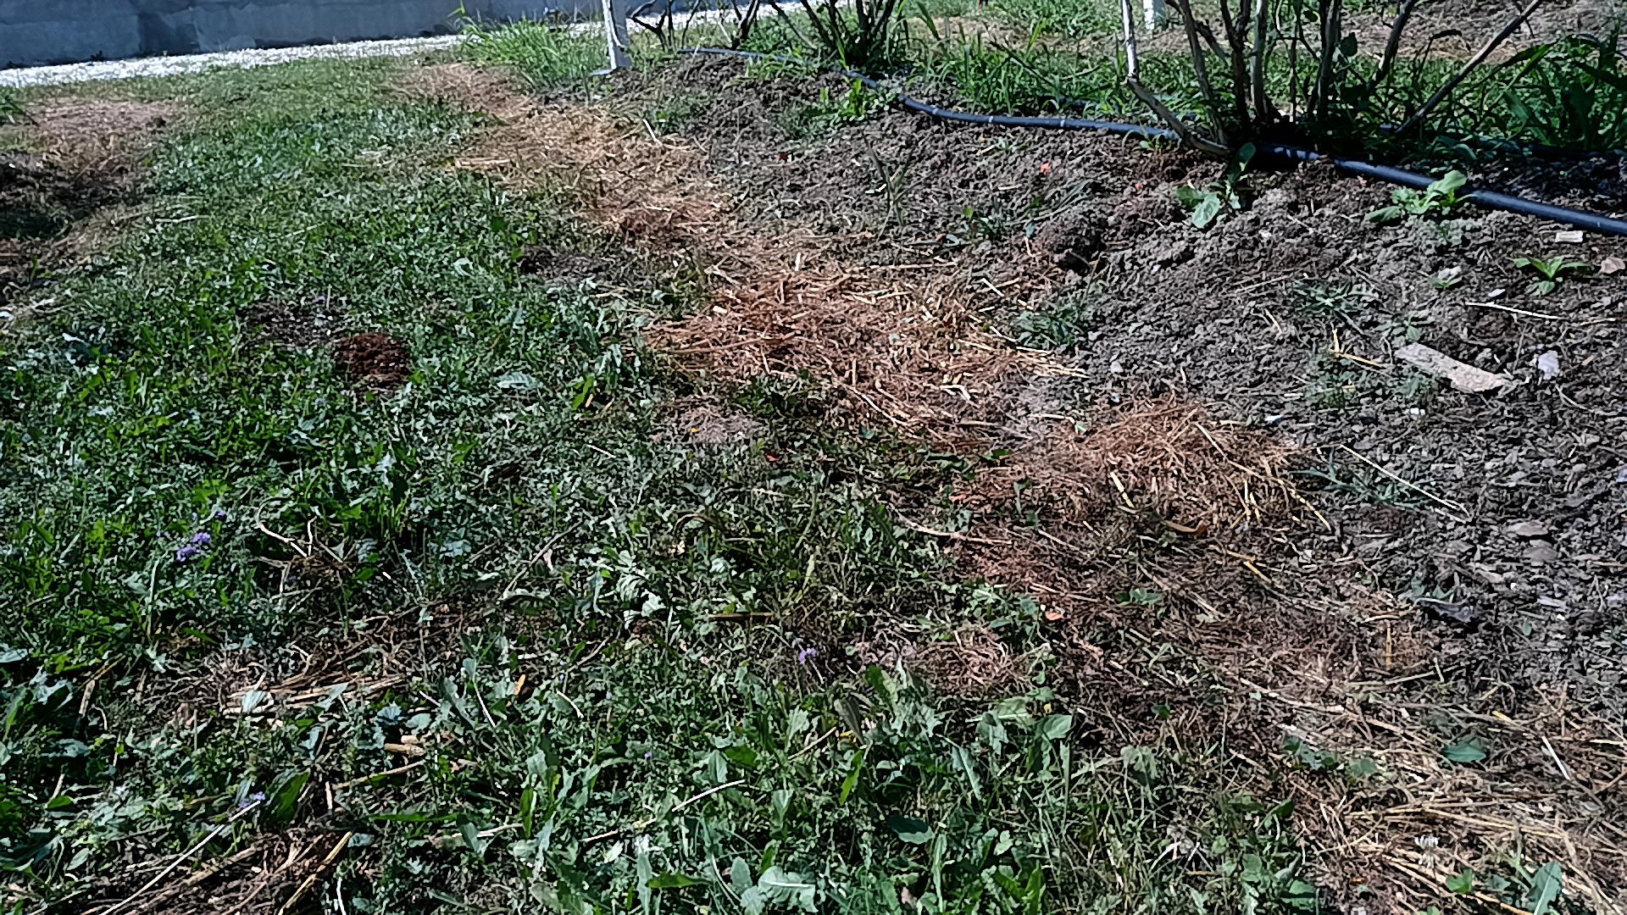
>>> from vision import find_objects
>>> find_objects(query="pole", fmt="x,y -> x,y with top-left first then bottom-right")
601,3 -> 636,78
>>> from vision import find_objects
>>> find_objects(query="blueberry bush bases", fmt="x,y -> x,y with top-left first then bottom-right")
637,3 -> 760,61
801,7 -> 920,99
1179,49 -> 1451,205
